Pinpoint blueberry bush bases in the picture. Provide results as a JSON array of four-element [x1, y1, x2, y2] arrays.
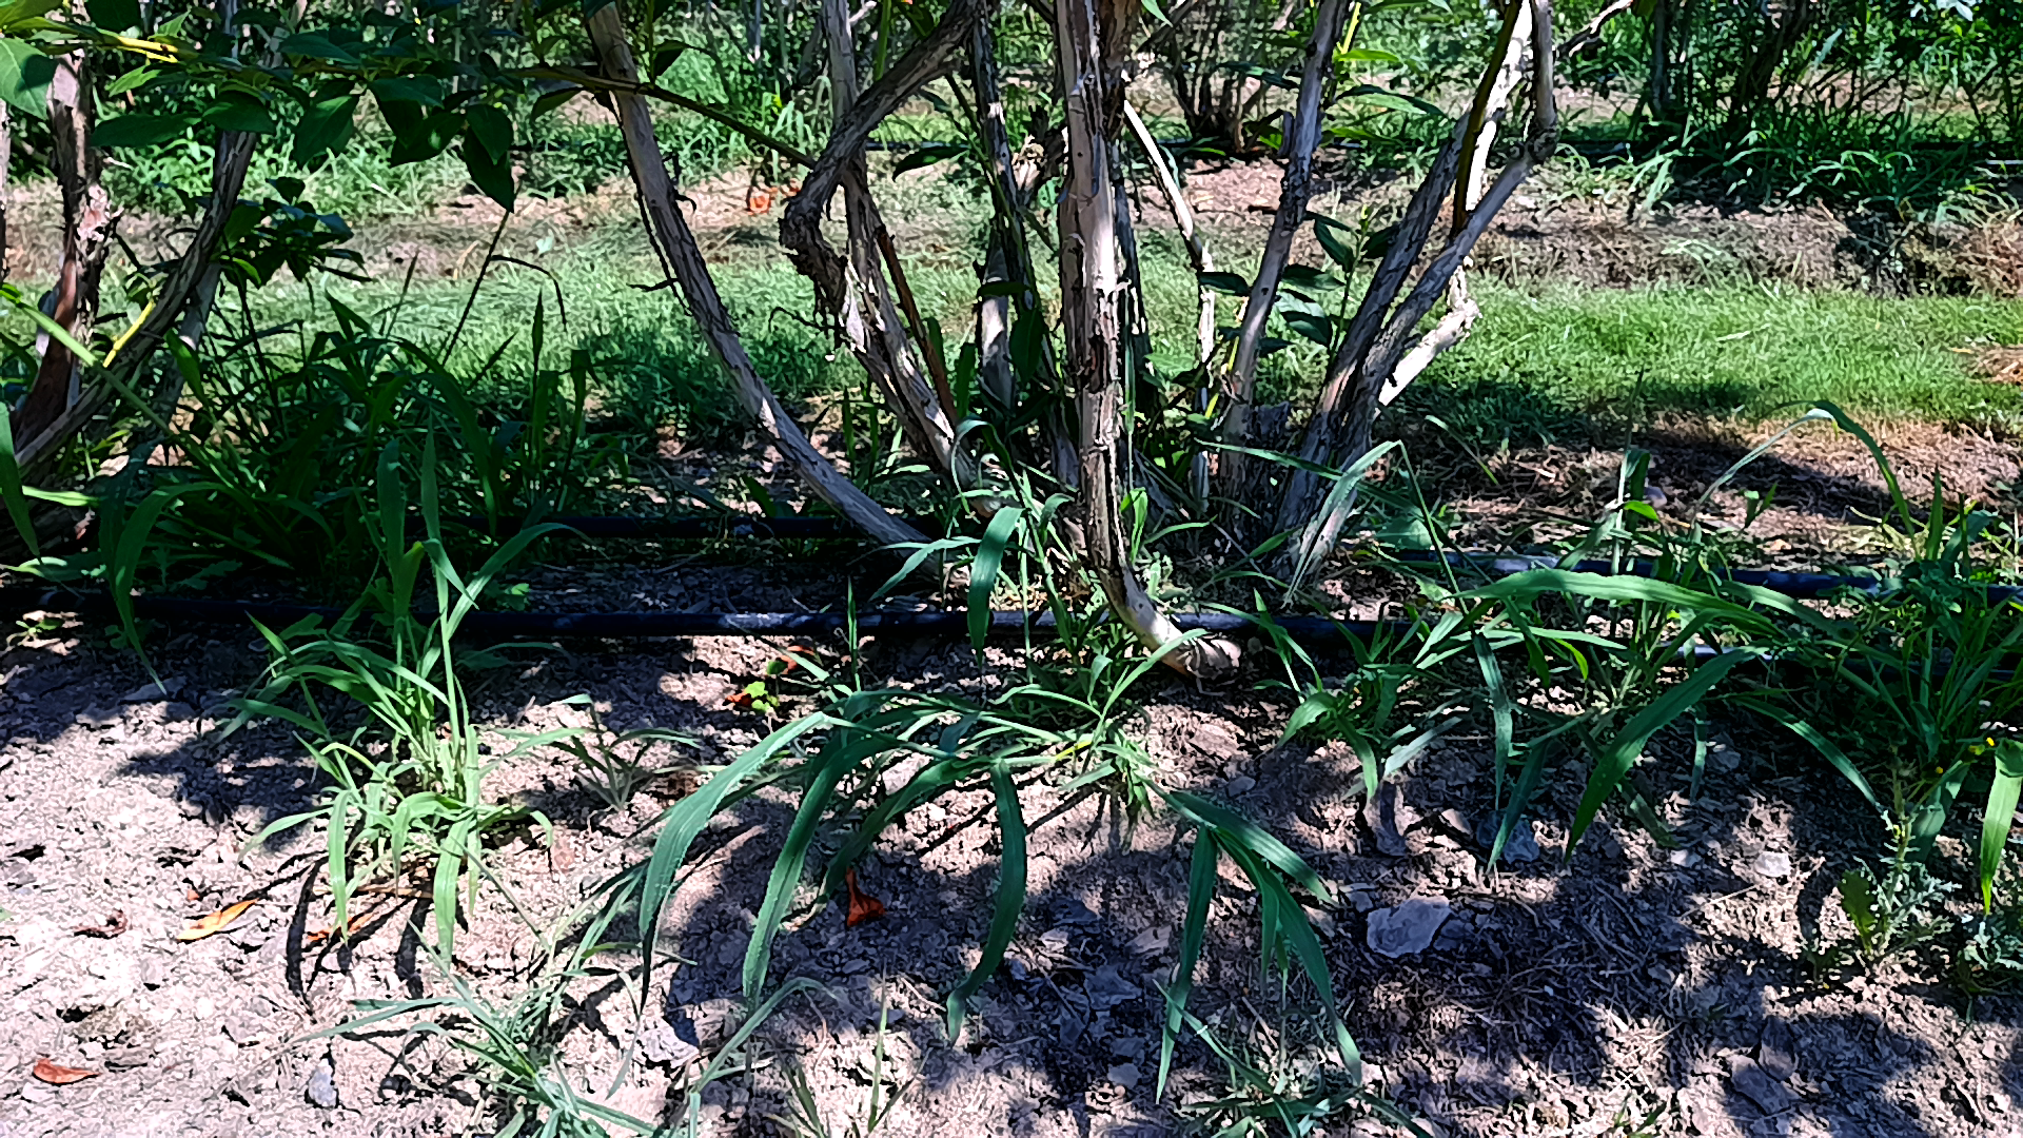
[[734, 261, 1466, 784], [0, 164, 230, 653]]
